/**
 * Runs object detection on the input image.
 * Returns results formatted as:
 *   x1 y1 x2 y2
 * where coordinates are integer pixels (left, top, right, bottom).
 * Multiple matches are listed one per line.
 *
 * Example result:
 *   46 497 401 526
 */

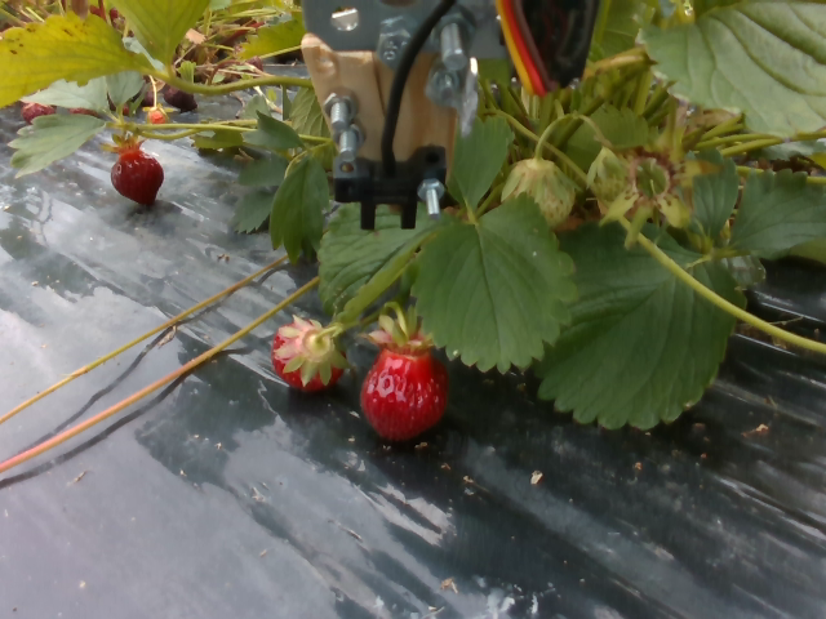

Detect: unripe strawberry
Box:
505 162 579 227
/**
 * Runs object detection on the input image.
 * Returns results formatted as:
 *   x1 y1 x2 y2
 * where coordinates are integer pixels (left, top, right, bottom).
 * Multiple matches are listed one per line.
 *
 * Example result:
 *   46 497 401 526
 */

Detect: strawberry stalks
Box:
526 110 581 181
384 299 424 357
113 119 136 157
307 305 359 353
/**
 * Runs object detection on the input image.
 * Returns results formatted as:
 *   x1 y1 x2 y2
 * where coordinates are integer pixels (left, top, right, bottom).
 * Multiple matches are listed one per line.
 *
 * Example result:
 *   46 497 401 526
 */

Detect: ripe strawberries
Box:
364 345 440 438
271 325 340 384
115 148 157 201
